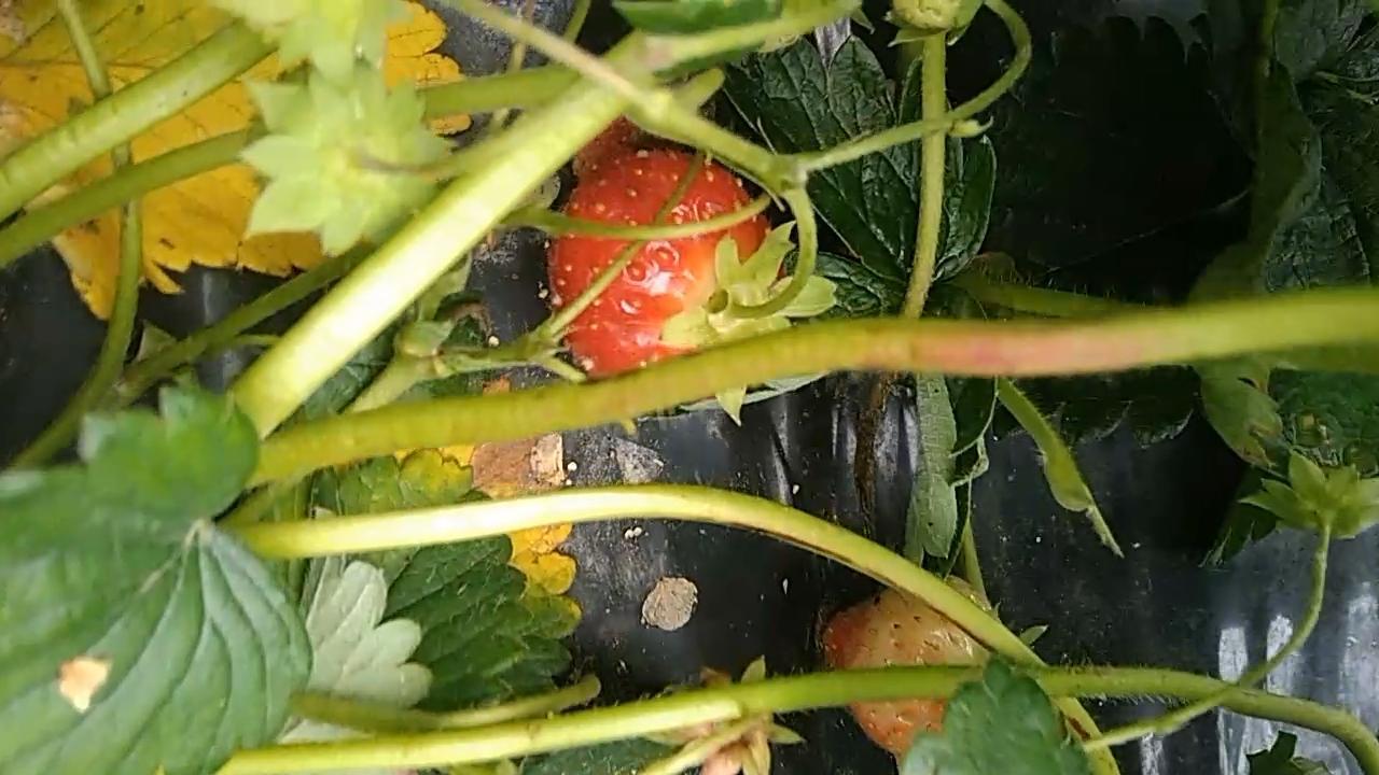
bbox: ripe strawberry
[548,152,783,386]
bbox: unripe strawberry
[820,570,993,760]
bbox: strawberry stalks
[965,4,1040,126]
[709,184,827,330]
